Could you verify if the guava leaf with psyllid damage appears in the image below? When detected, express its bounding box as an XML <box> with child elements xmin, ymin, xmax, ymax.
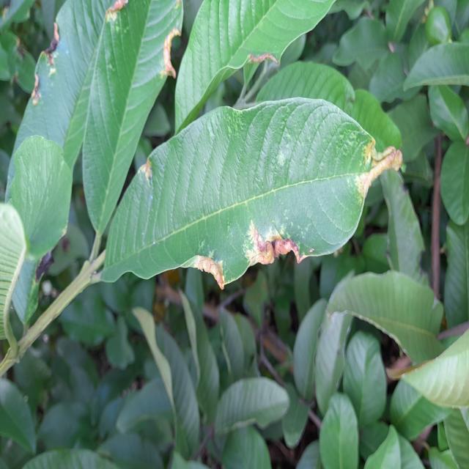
<box><xmin>88</xmin><ymin>100</ymin><xmax>407</xmax><ymax>289</ymax></box>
